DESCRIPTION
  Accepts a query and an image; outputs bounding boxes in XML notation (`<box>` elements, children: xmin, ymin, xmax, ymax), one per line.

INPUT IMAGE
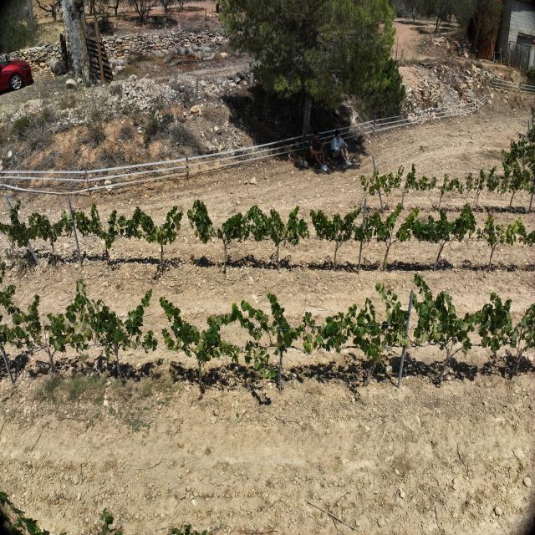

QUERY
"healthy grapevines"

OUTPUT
<box><xmin>238</xmin><ymin>290</ymin><xmax>316</xmax><ymax>395</ymax></box>
<box><xmin>8</xmin><ymin>299</ymin><xmax>81</xmax><ymax>385</ymax></box>
<box><xmin>402</xmin><ymin>273</ymin><xmax>495</xmax><ymax>392</ymax></box>
<box><xmin>64</xmin><ymin>284</ymin><xmax>160</xmax><ymax>391</ymax></box>
<box><xmin>487</xmin><ymin>292</ymin><xmax>535</xmax><ymax>387</ymax></box>
<box><xmin>319</xmin><ymin>280</ymin><xmax>411</xmax><ymax>397</ymax></box>
<box><xmin>159</xmin><ymin>295</ymin><xmax>240</xmax><ymax>397</ymax></box>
